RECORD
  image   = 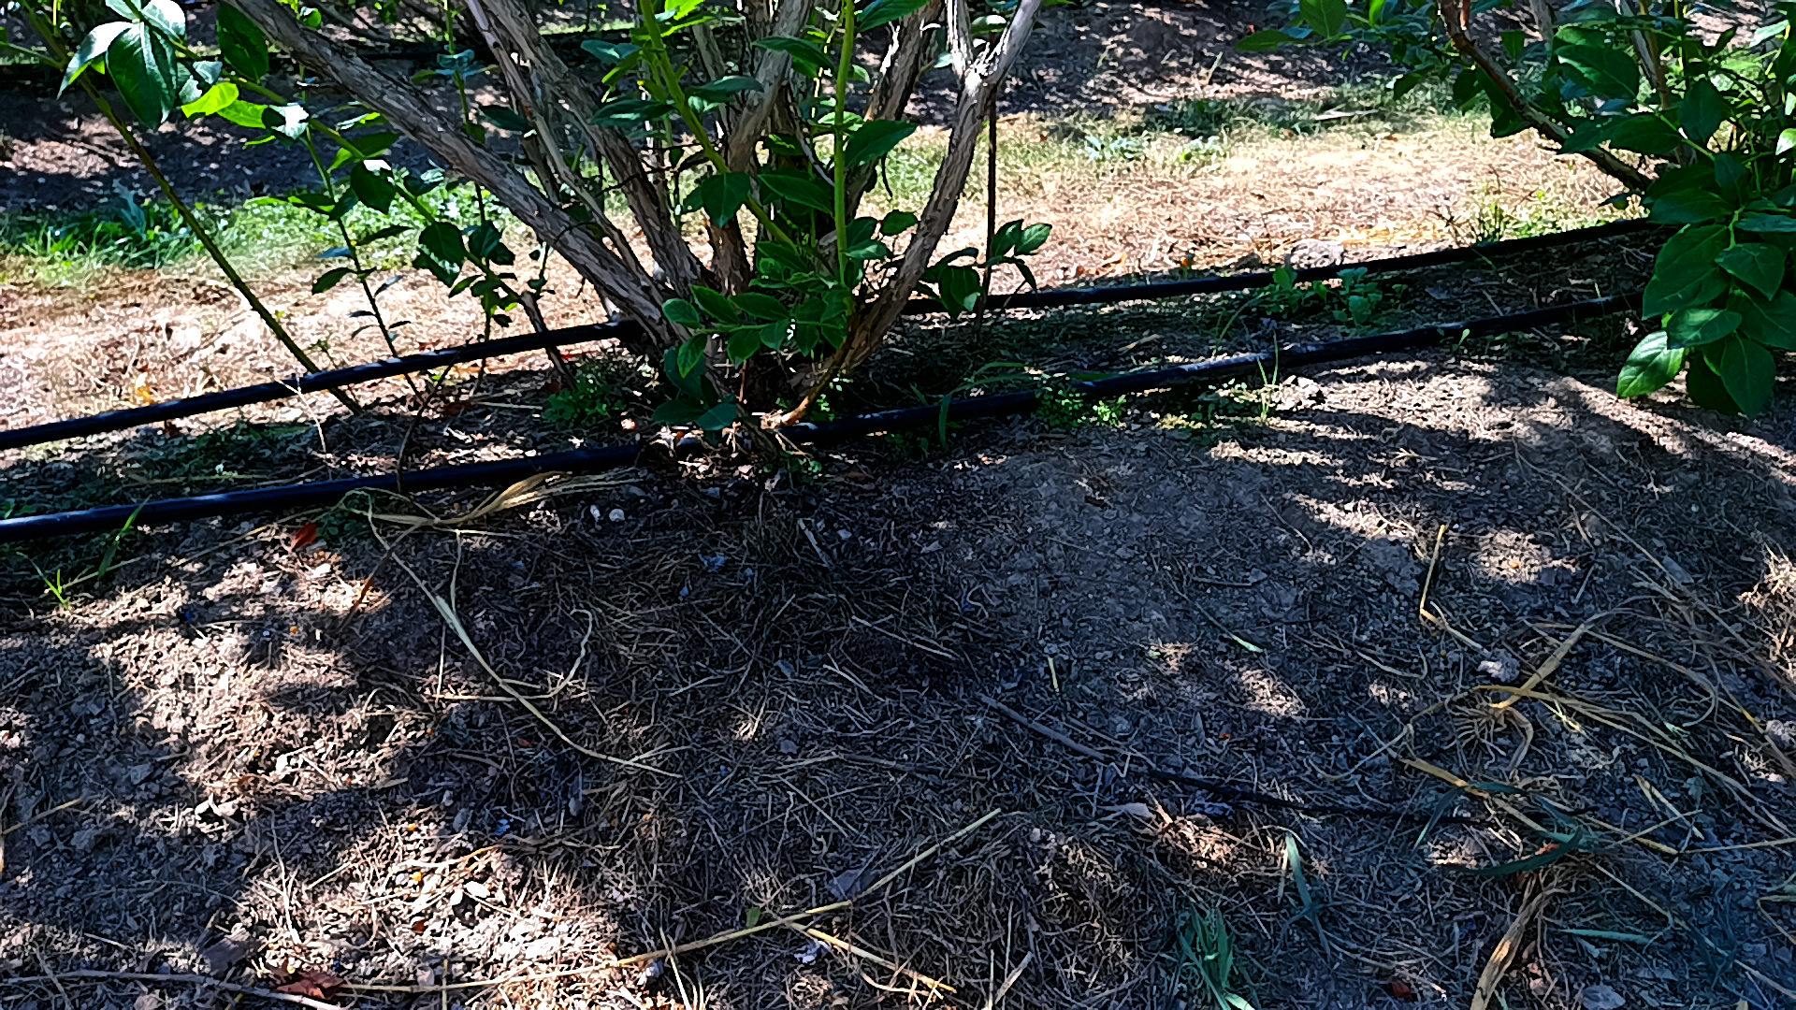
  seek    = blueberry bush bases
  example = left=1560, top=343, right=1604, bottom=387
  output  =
left=1504, top=45, right=1795, bottom=351
left=494, top=106, right=1062, bottom=454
